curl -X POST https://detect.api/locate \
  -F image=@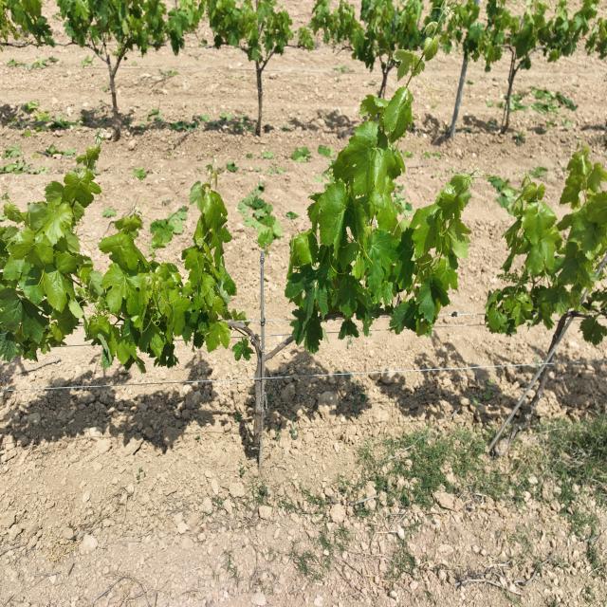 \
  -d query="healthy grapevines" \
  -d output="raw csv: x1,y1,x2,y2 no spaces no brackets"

477,143,607,444
92,112,475,489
